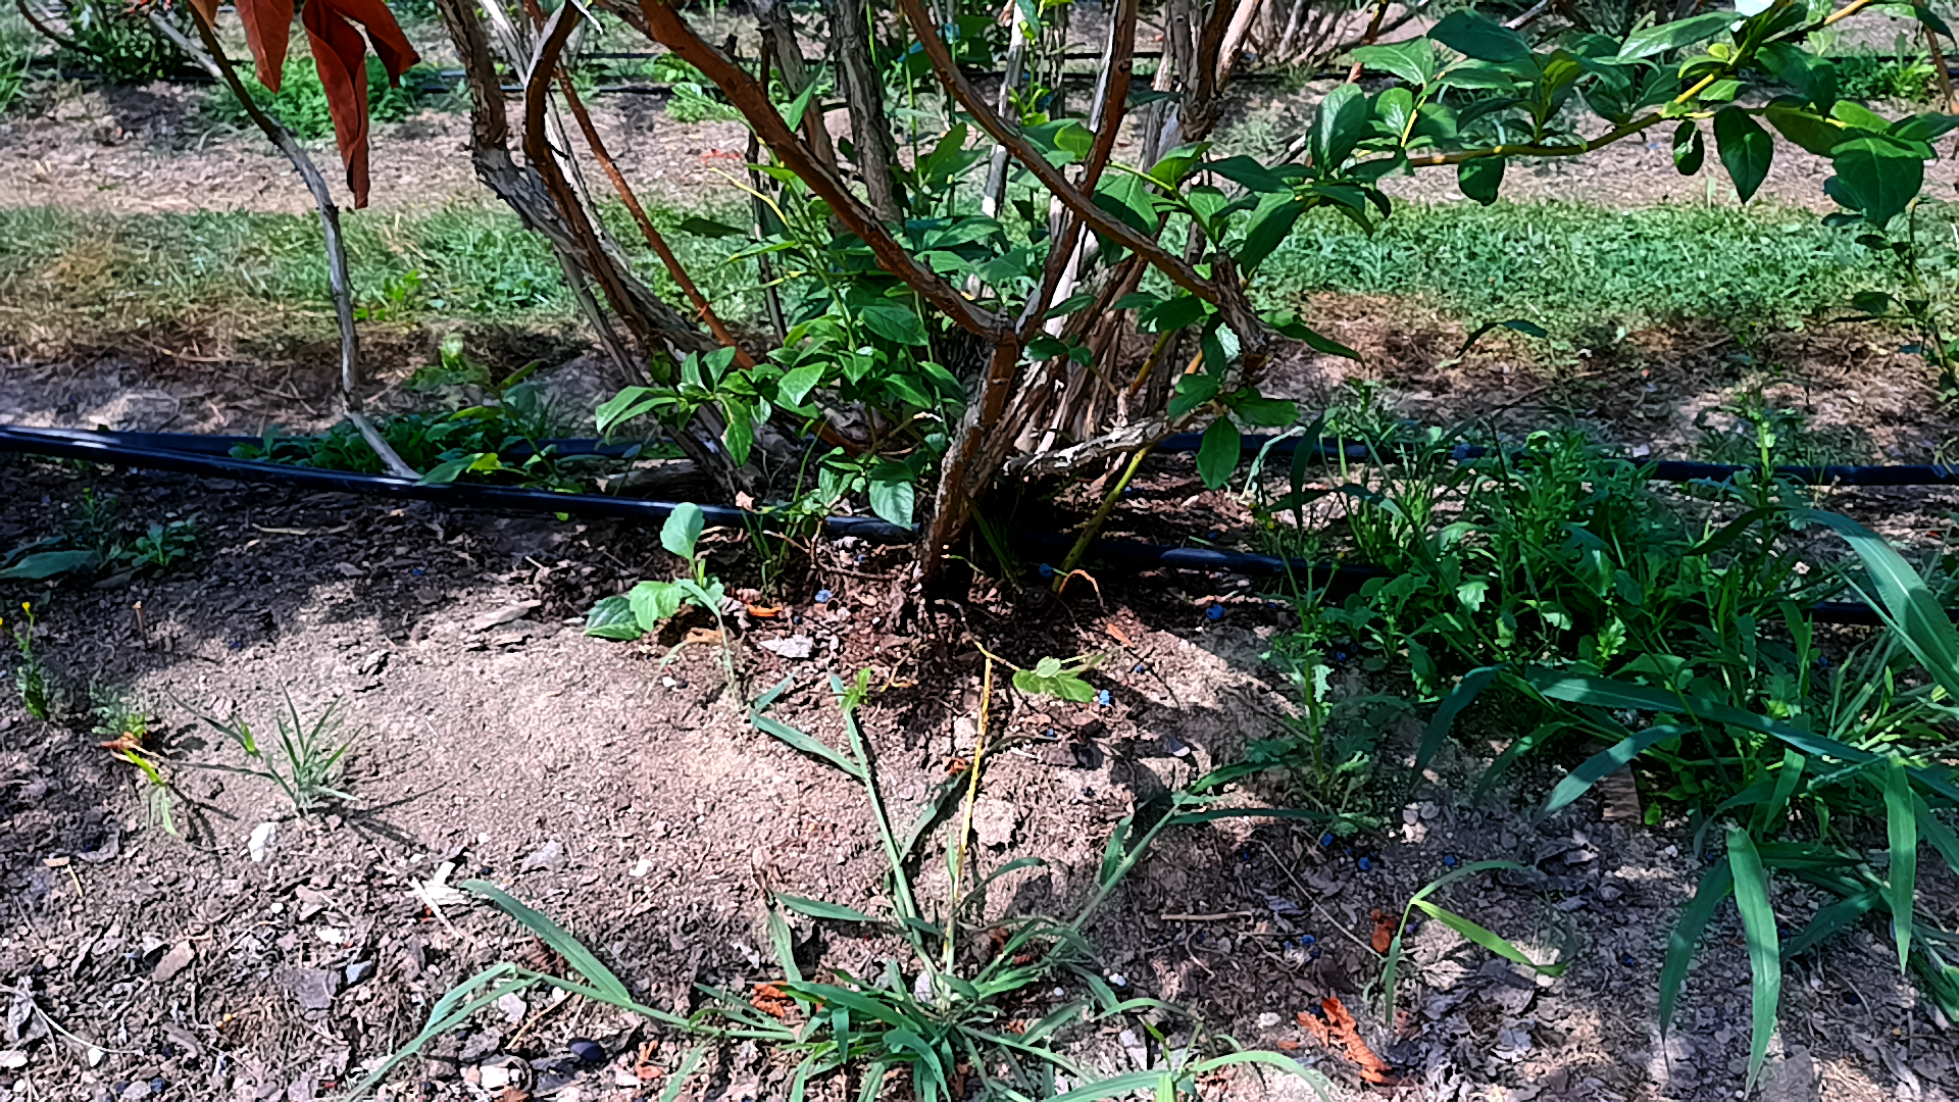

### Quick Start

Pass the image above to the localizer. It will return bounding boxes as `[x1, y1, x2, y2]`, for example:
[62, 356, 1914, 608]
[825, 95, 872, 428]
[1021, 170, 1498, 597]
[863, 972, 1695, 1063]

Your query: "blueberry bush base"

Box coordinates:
[693, 174, 1318, 680]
